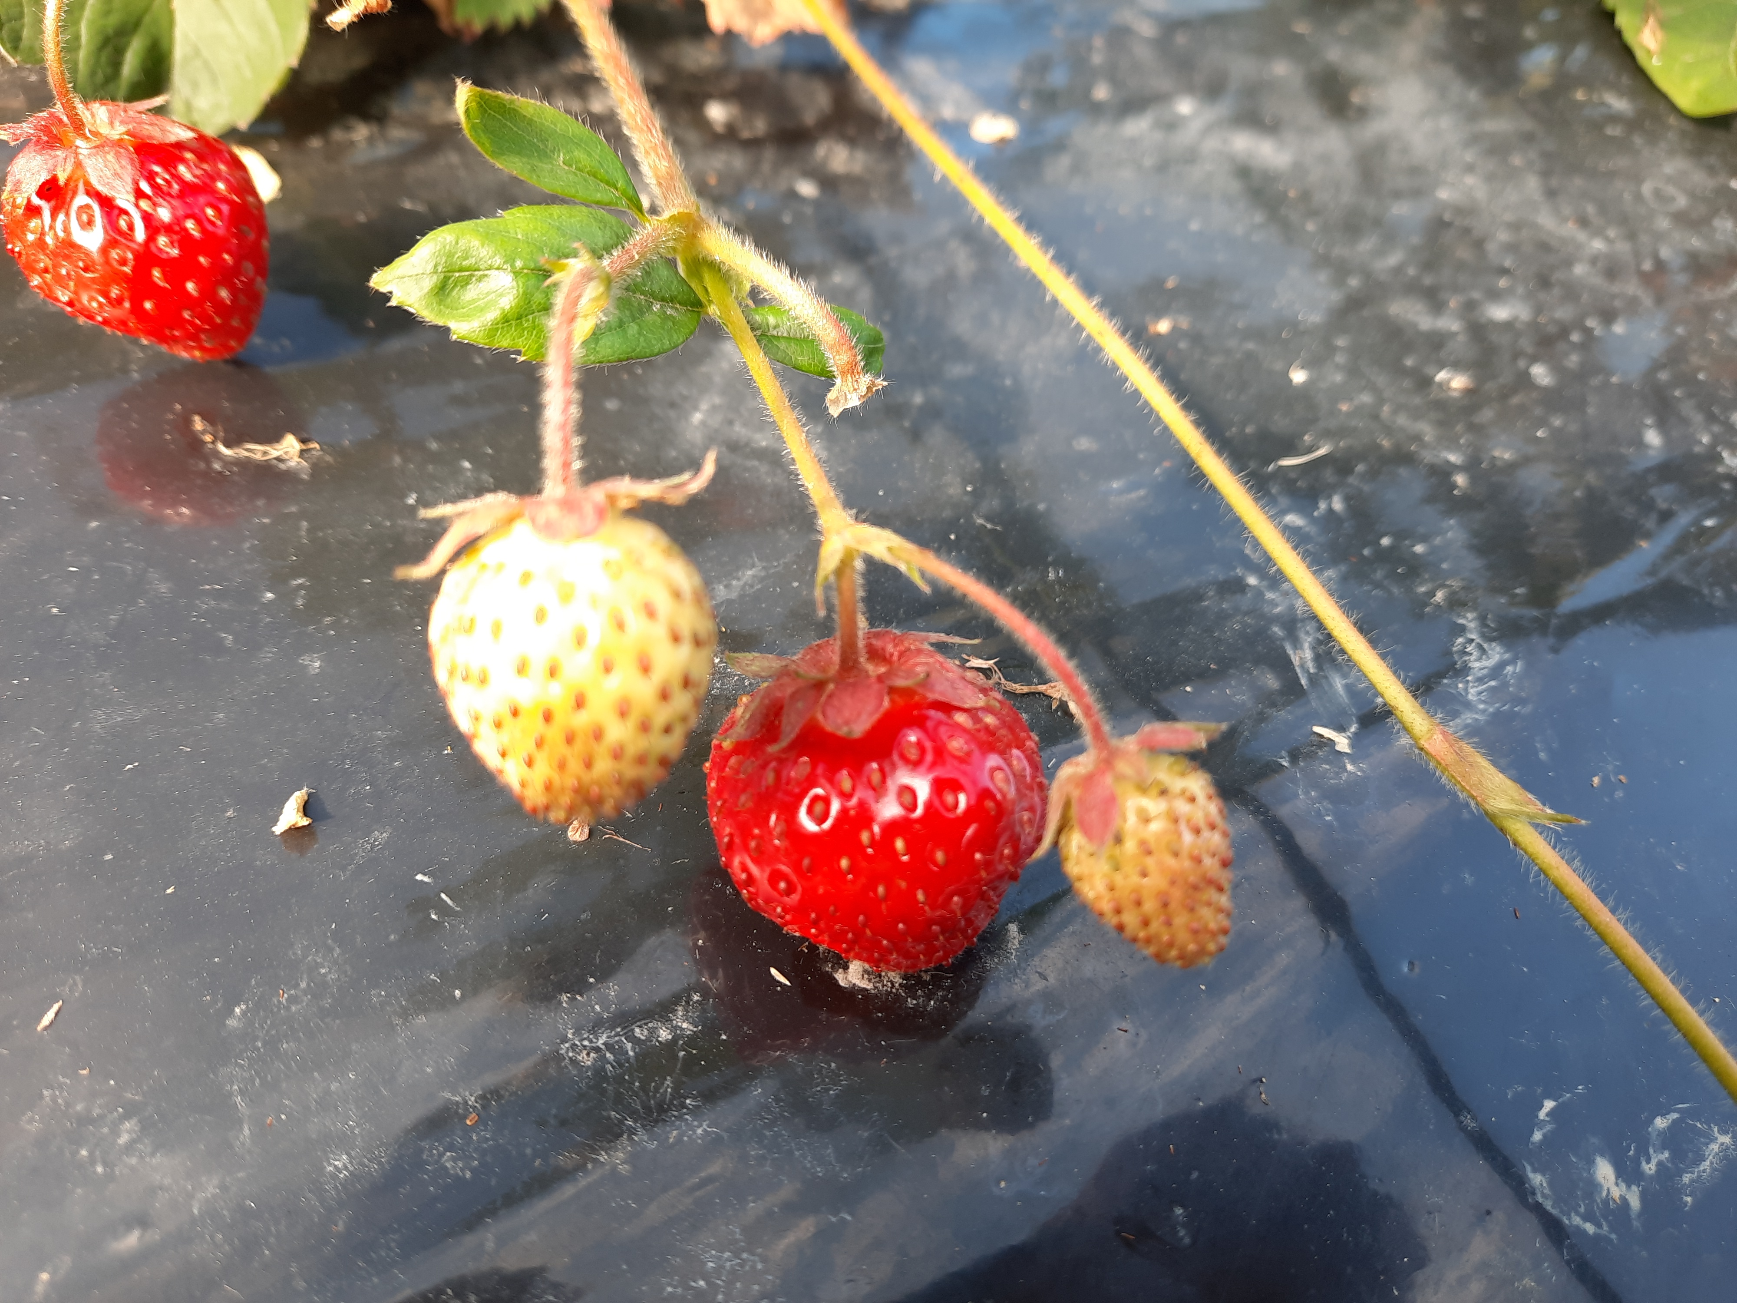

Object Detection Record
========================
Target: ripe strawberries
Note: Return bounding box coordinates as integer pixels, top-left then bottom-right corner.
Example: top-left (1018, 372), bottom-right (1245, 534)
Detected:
top-left (9, 106), bottom-right (288, 365)
top-left (718, 634), bottom-right (1035, 988)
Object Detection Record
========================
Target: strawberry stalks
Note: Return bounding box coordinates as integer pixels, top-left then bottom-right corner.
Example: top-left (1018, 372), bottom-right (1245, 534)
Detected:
top-left (944, 551), bottom-right (1125, 778)
top-left (520, 247), bottom-right (617, 531)
top-left (28, 0), bottom-right (115, 157)
top-left (808, 512), bottom-right (897, 746)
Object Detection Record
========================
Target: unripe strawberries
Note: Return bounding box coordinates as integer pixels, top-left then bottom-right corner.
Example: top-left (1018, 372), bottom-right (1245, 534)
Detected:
top-left (1085, 735), bottom-right (1241, 960)
top-left (441, 503), bottom-right (705, 826)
